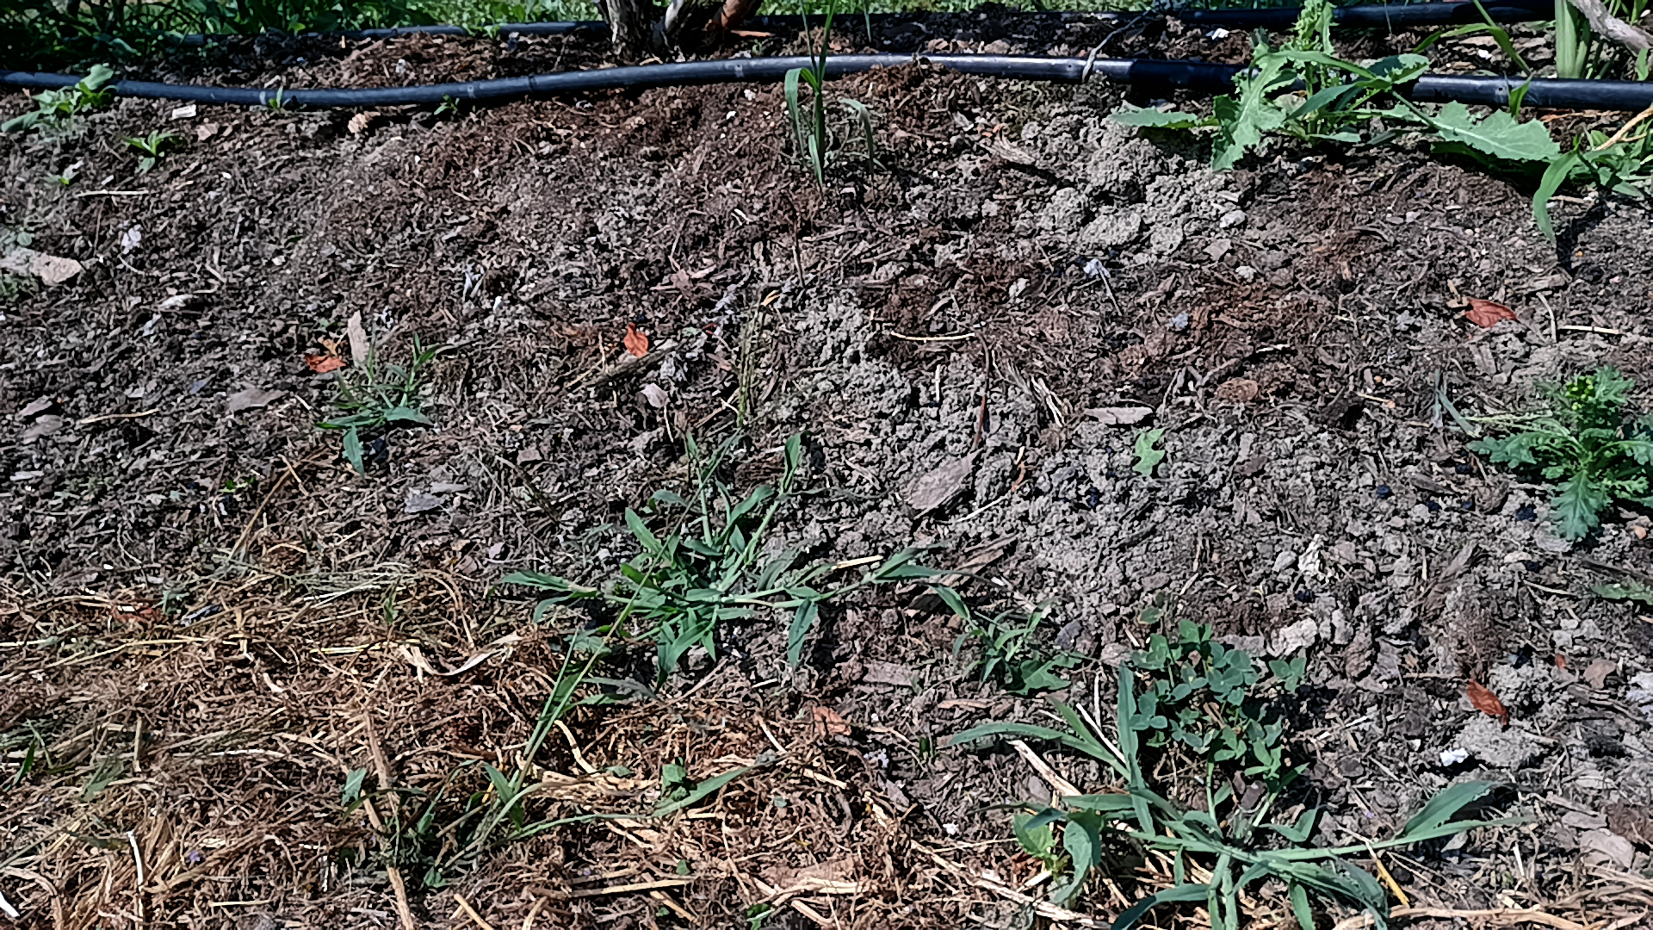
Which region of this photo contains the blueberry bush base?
[575,0,771,101]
